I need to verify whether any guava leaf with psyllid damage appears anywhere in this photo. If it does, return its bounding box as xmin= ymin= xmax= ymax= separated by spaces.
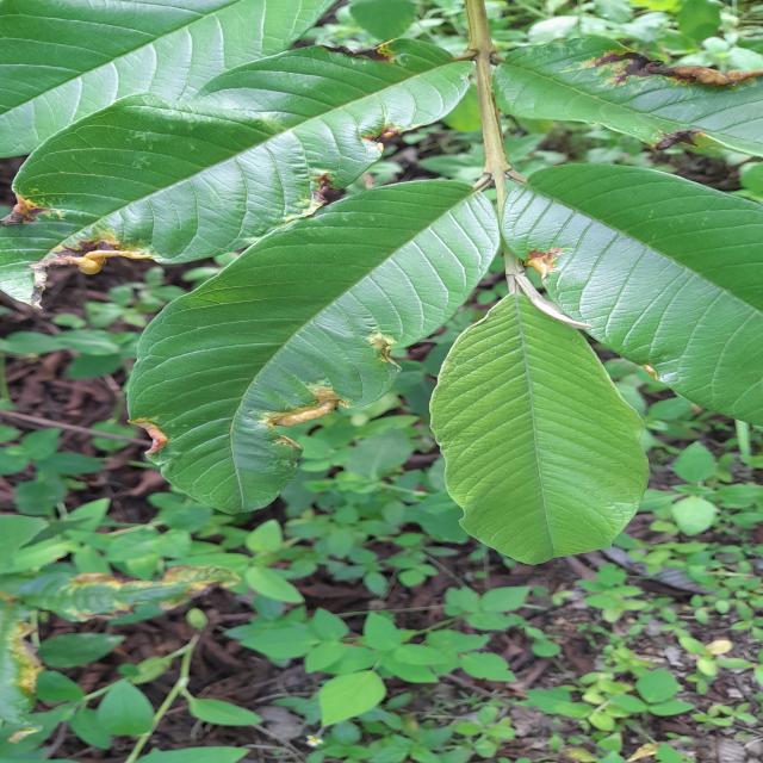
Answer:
xmin=119 ymin=174 xmax=531 ymax=549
